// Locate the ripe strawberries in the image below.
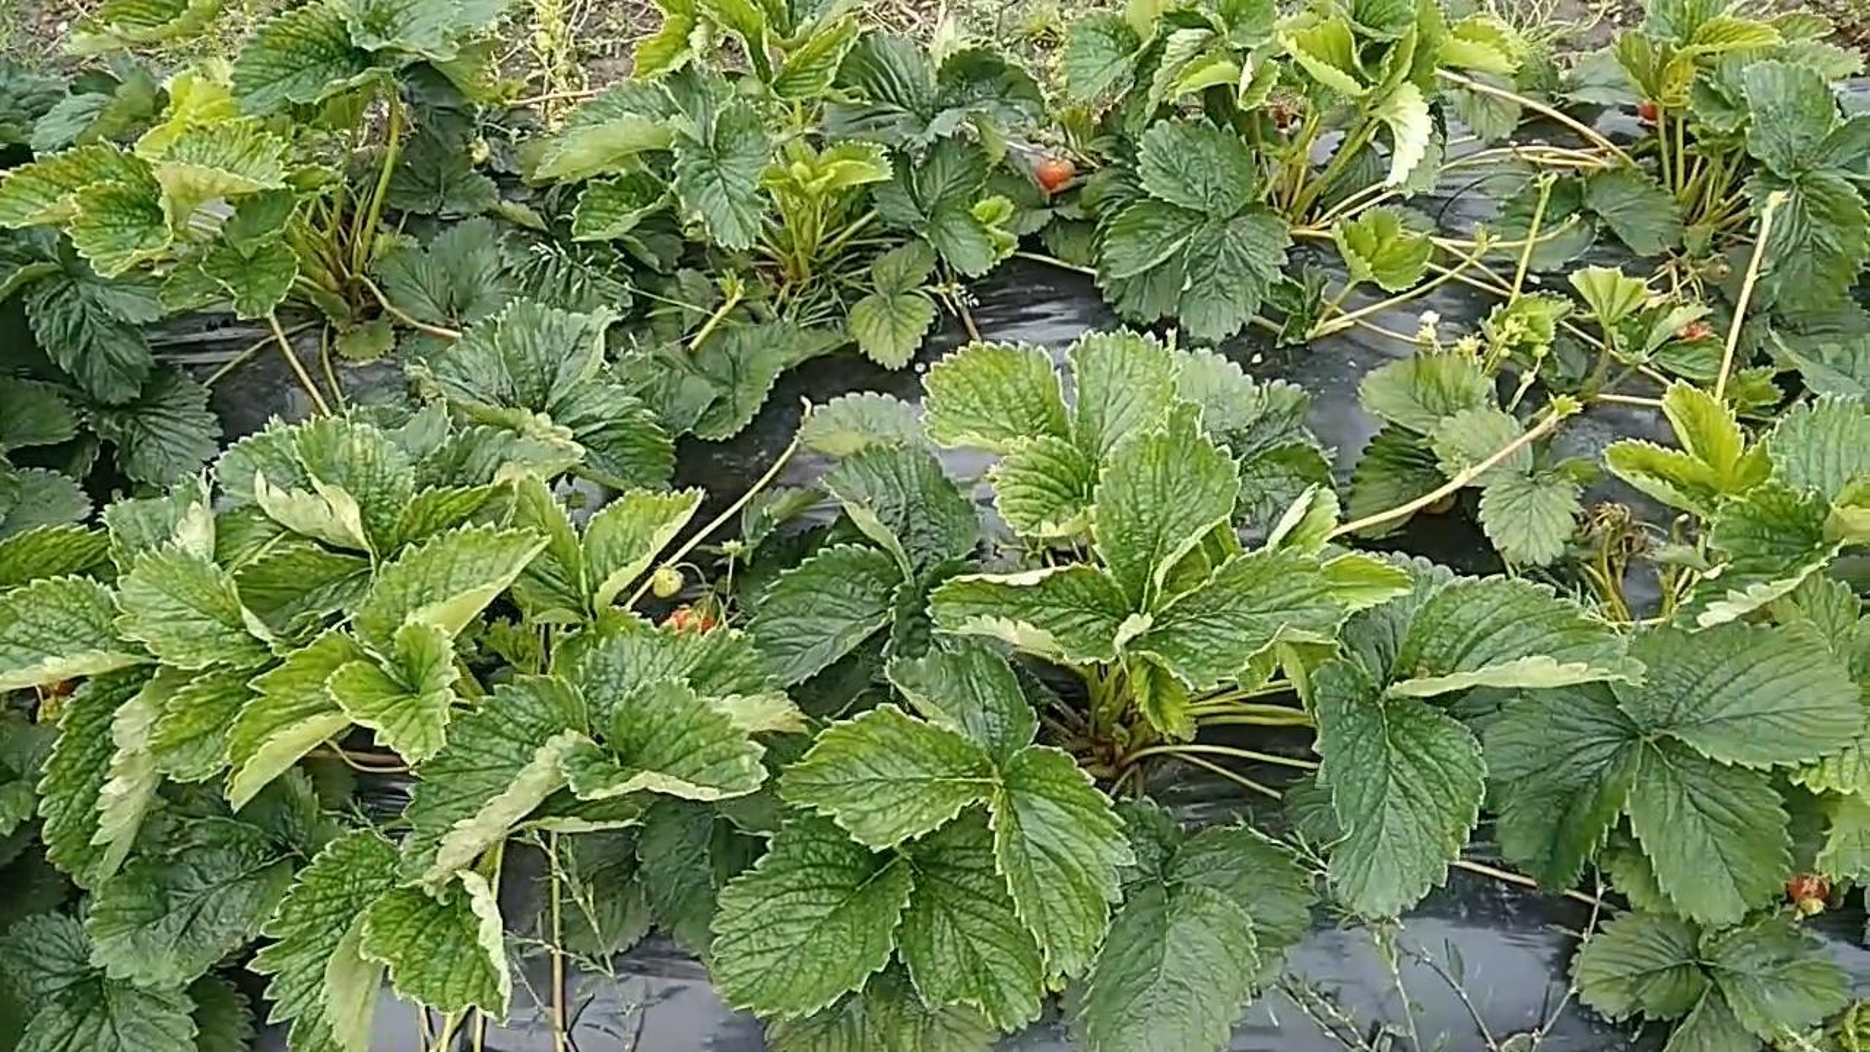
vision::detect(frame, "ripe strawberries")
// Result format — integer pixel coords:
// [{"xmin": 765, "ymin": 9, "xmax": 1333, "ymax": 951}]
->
[
  {"xmin": 1789, "ymin": 862, "xmax": 1834, "ymax": 925},
  {"xmin": 1034, "ymin": 157, "xmax": 1075, "ymax": 189},
  {"xmin": 668, "ymin": 608, "xmax": 713, "ymax": 636}
]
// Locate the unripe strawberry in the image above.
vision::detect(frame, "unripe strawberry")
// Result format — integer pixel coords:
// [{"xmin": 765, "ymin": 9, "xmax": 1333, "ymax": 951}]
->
[{"xmin": 652, "ymin": 564, "xmax": 684, "ymax": 602}]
